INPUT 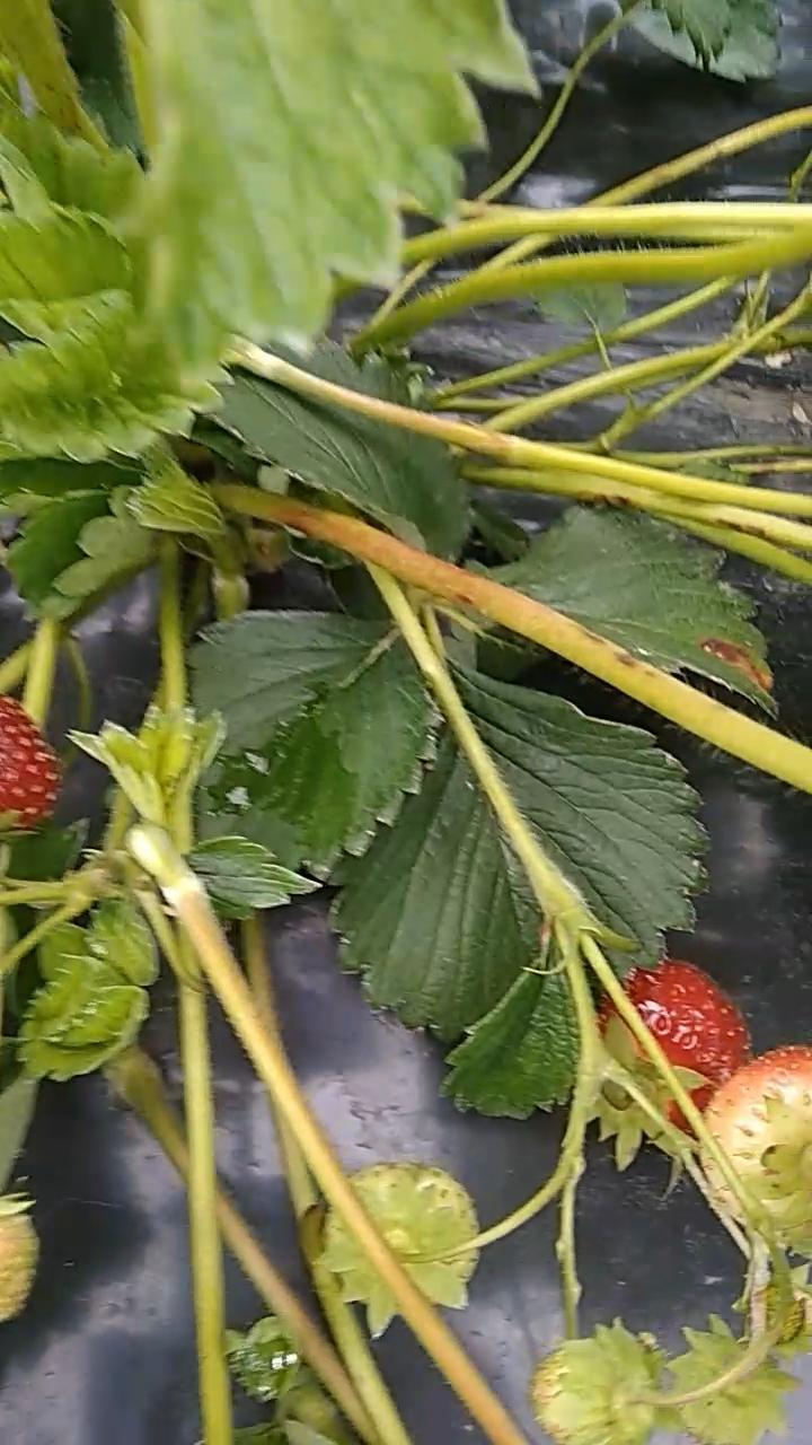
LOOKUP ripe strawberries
[0,686,78,847]
[604,956,752,1092]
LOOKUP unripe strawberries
[533,1334,659,1445]
[701,1032,812,1263]
[320,1156,497,1294]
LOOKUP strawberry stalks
[604,1367,766,1427]
[393,1210,534,1285]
